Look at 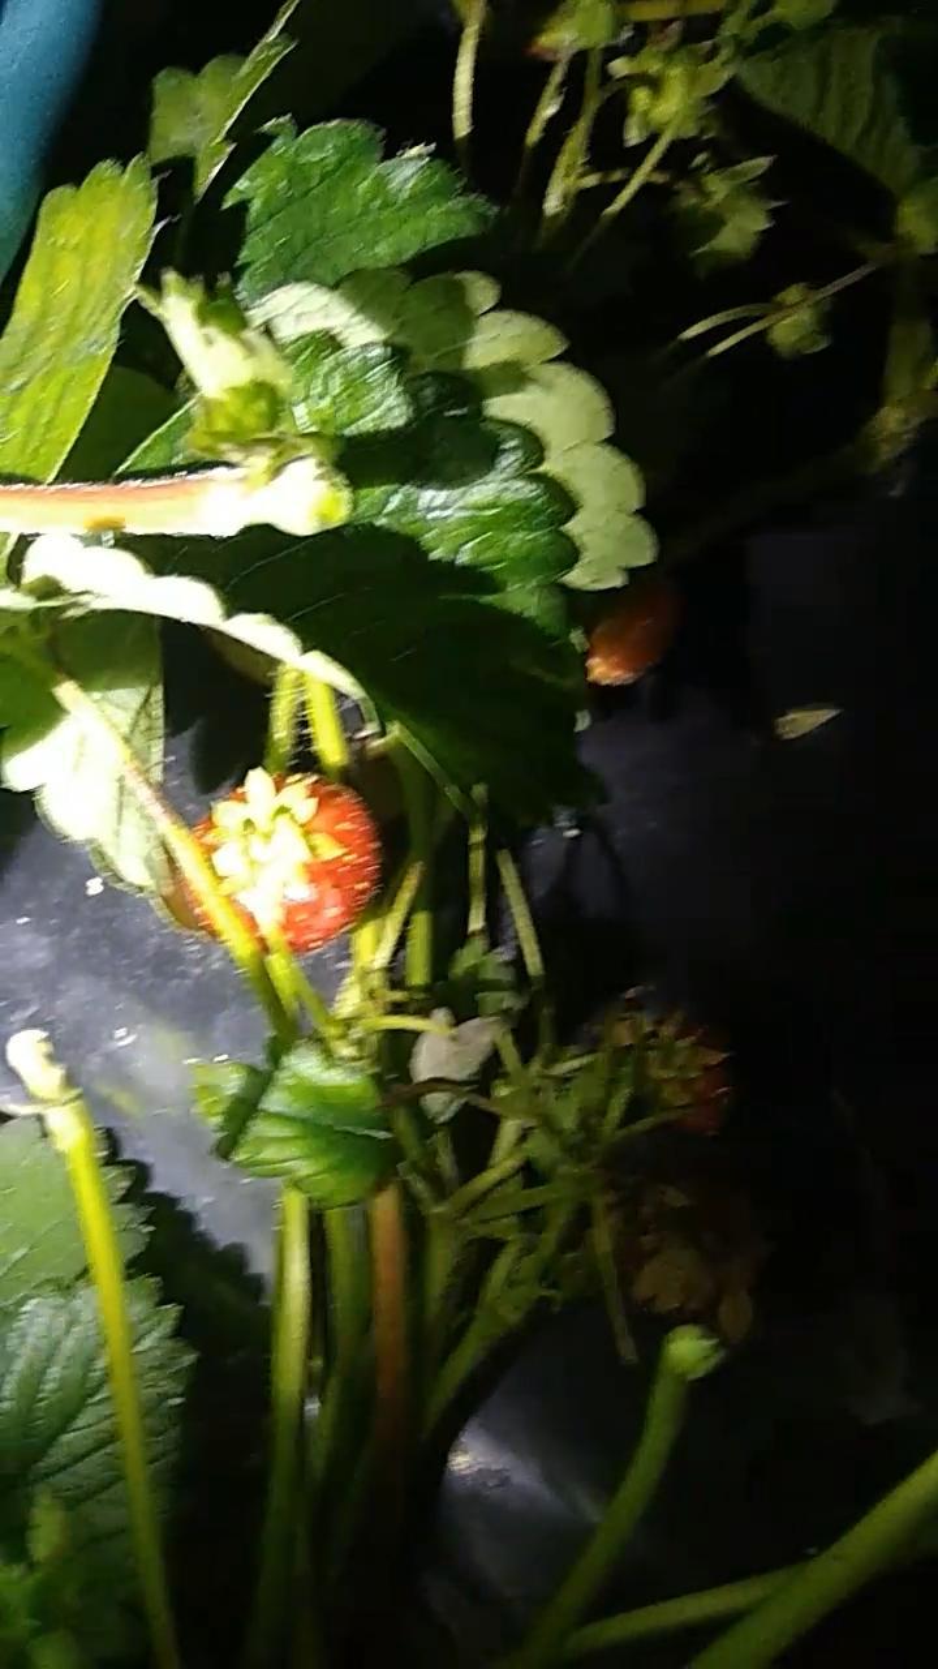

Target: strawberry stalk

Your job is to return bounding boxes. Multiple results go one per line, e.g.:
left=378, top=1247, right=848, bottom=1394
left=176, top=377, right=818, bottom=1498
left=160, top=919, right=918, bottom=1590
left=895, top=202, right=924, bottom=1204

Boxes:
left=240, top=836, right=326, bottom=1075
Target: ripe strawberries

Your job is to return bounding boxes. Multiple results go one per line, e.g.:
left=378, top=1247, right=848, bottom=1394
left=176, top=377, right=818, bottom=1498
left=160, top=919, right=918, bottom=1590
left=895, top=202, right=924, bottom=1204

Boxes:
left=565, top=565, right=691, bottom=690
left=185, top=770, right=392, bottom=958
